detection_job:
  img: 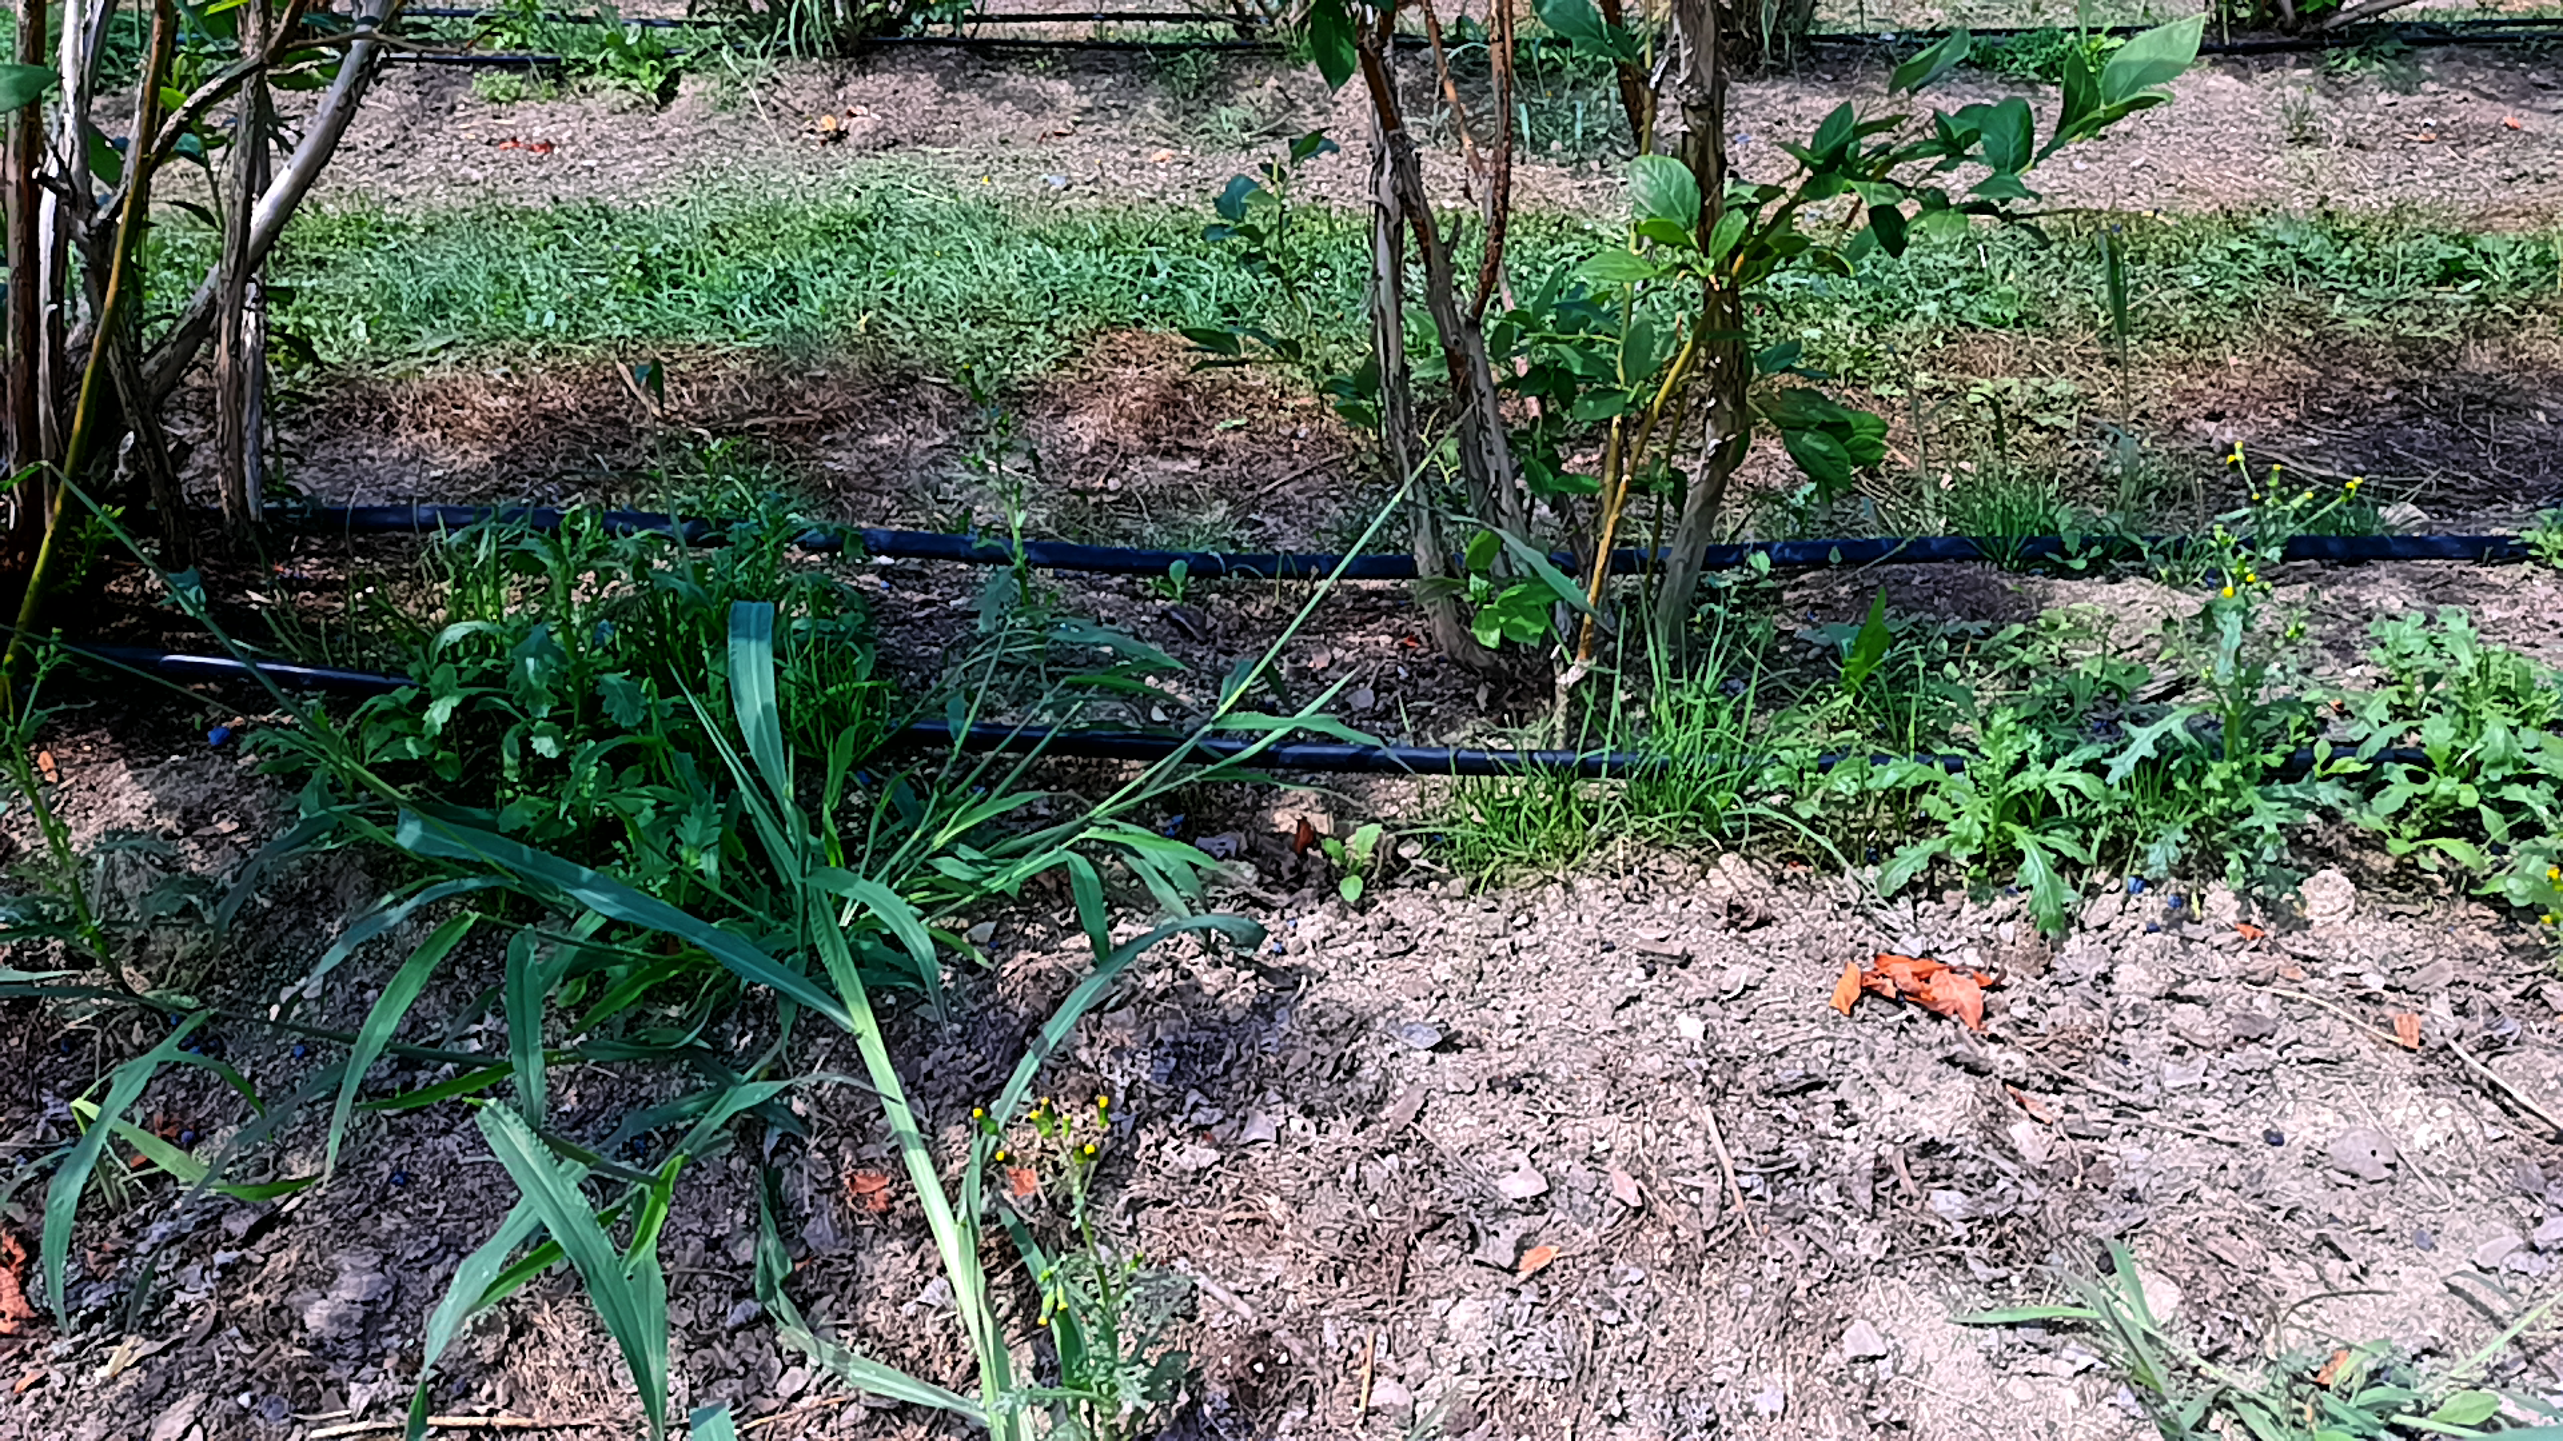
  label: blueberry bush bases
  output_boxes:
[1351,399,1802,843]
[0,236,364,750]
